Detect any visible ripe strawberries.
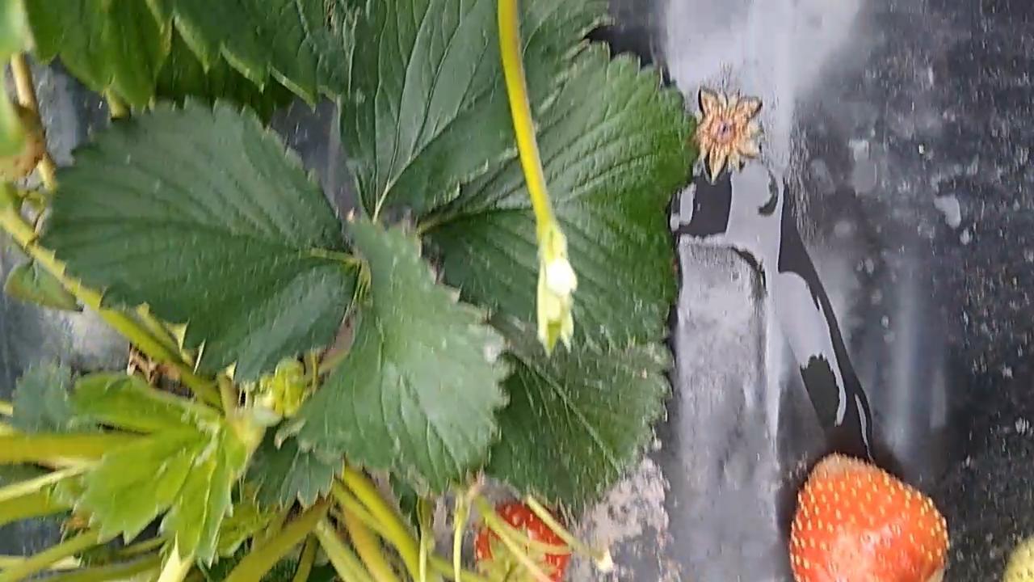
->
[467,500,573,582]
[784,441,960,582]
